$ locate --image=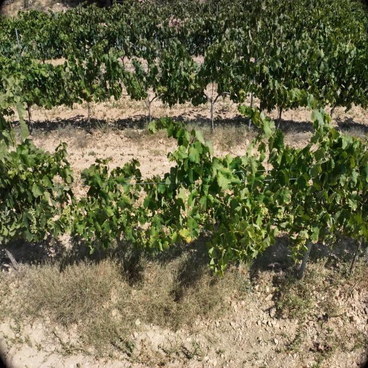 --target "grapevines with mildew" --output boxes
[163,123,308,282]
[308,119,368,282]
[69,152,178,288]
[0,137,76,282]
